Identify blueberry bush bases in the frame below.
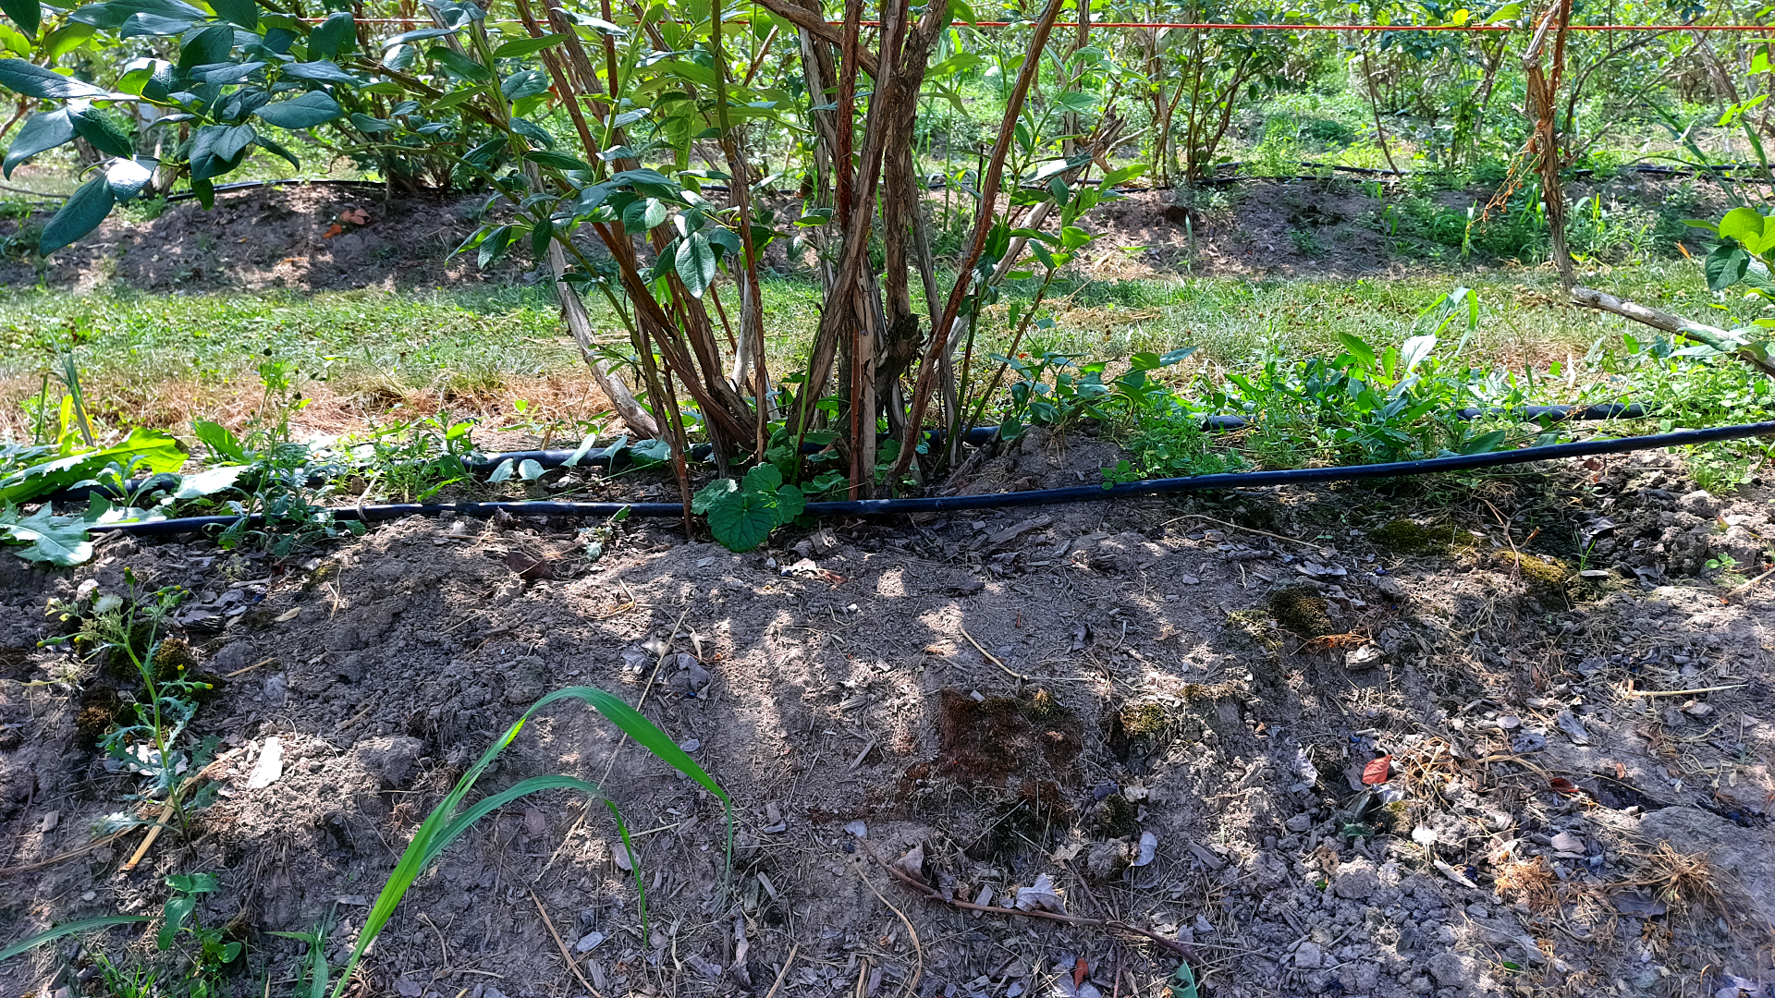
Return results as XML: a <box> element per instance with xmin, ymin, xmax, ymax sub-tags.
<box><xmin>1367</xmin><ymin>126</ymin><xmax>1508</xmax><ymax>225</ymax></box>
<box><xmin>1101</xmin><ymin>117</ymin><xmax>1255</xmax><ymax>226</ymax></box>
<box><xmin>551</xmin><ymin>299</ymin><xmax>1062</xmax><ymax>606</ymax></box>
<box><xmin>360</xmin><ymin>107</ymin><xmax>520</xmax><ymax>230</ymax></box>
